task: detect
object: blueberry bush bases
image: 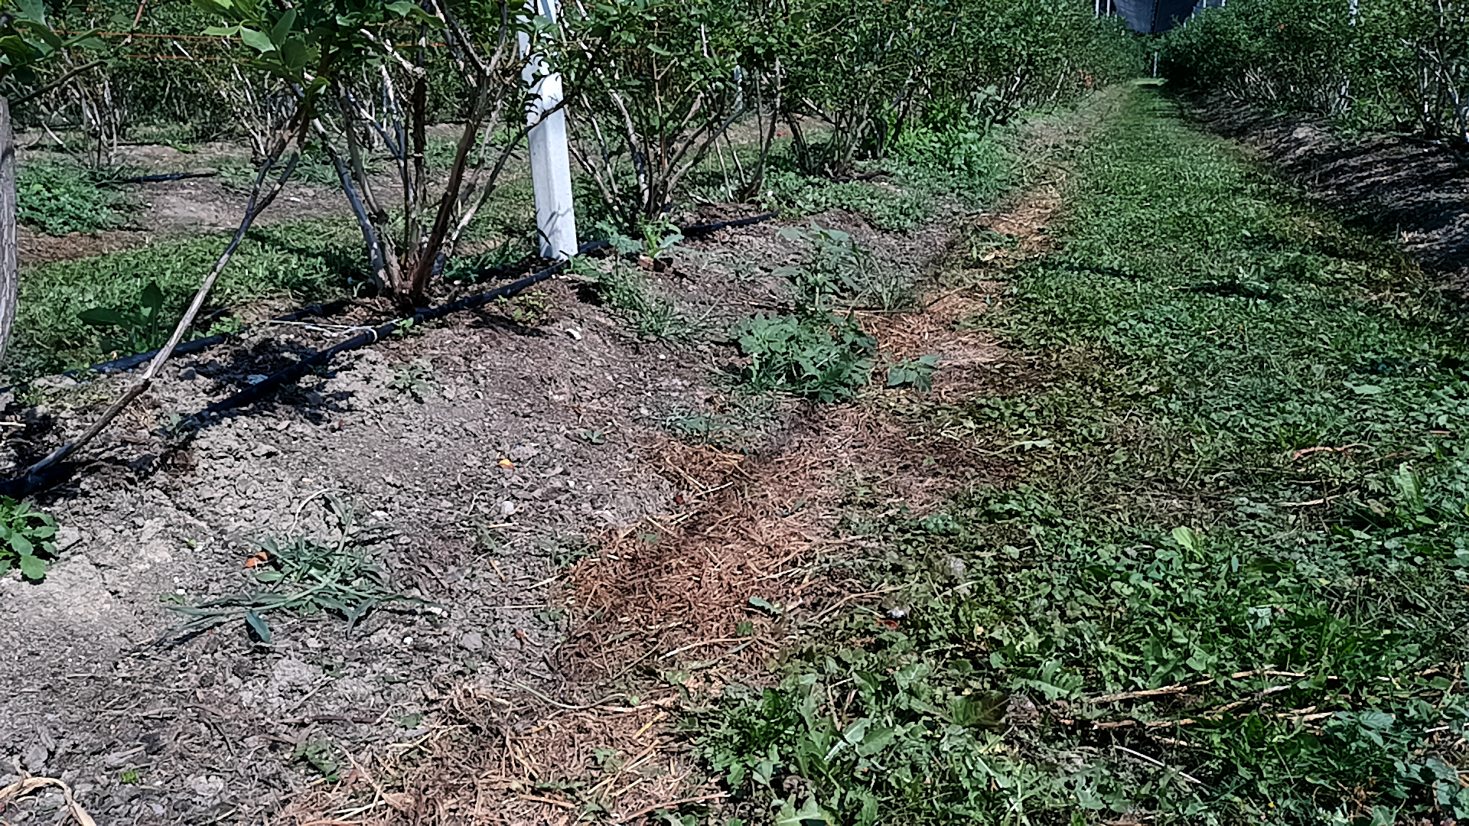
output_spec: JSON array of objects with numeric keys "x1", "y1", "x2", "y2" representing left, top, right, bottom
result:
[
  {"x1": 334, "y1": 198, "x2": 503, "y2": 338},
  {"x1": 2, "y1": 307, "x2": 194, "y2": 545},
  {"x1": 240, "y1": 138, "x2": 290, "y2": 176},
  {"x1": 73, "y1": 138, "x2": 138, "y2": 193},
  {"x1": 782, "y1": 130, "x2": 869, "y2": 188},
  {"x1": 1392, "y1": 81, "x2": 1467, "y2": 166},
  {"x1": 700, "y1": 149, "x2": 780, "y2": 222},
  {"x1": 583, "y1": 153, "x2": 728, "y2": 262}
]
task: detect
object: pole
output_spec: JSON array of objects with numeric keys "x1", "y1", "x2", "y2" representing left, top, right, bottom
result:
[{"x1": 512, "y1": 11, "x2": 584, "y2": 268}]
